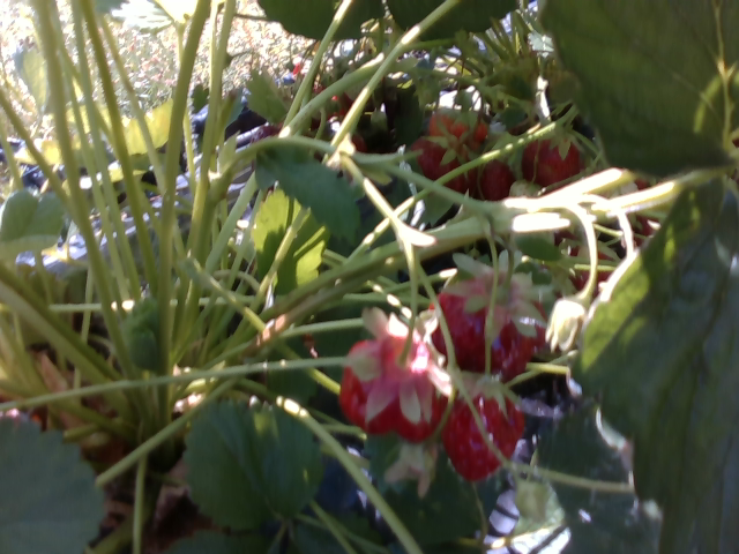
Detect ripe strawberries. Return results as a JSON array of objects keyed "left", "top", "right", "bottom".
[
  {"left": 413, "top": 136, "right": 473, "bottom": 195},
  {"left": 430, "top": 282, "right": 549, "bottom": 382},
  {"left": 476, "top": 154, "right": 517, "bottom": 200},
  {"left": 337, "top": 329, "right": 439, "bottom": 436},
  {"left": 524, "top": 130, "right": 588, "bottom": 190},
  {"left": 446, "top": 393, "right": 523, "bottom": 480}
]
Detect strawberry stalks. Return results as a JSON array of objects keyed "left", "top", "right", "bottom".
[
  {"left": 497, "top": 222, "right": 515, "bottom": 310},
  {"left": 483, "top": 325, "right": 493, "bottom": 414},
  {"left": 449, "top": 109, "right": 489, "bottom": 161},
  {"left": 387, "top": 270, "right": 419, "bottom": 382}
]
